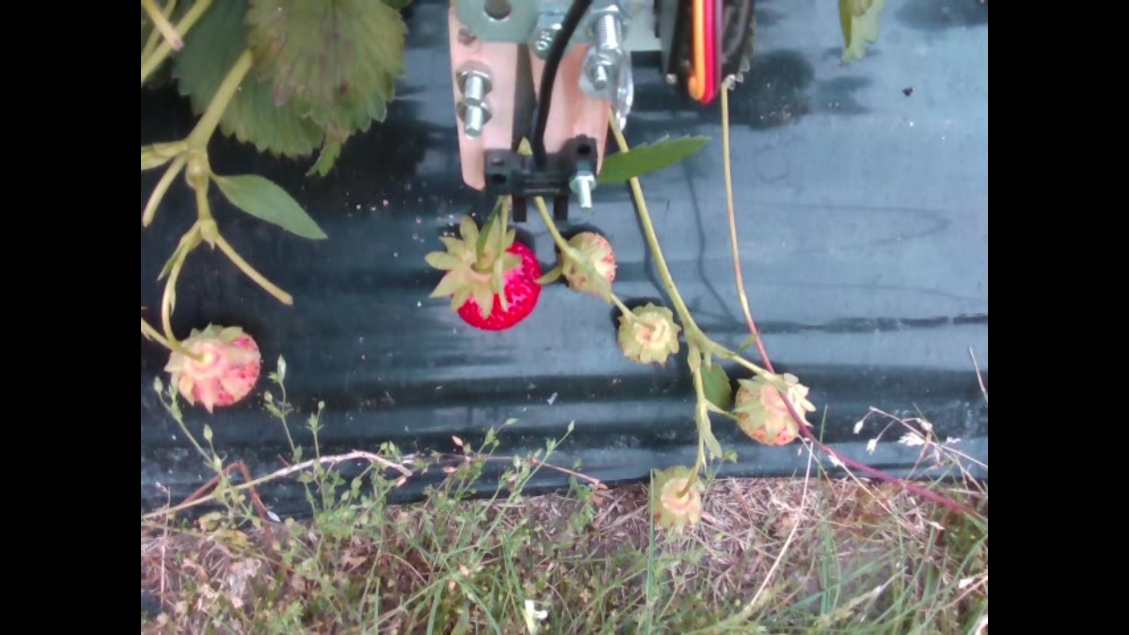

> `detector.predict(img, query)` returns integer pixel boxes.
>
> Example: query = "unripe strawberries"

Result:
[560,229,617,295]
[164,321,258,411]
[615,308,681,374]
[738,373,811,451]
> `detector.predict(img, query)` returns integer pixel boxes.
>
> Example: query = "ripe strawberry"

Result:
[443,233,547,329]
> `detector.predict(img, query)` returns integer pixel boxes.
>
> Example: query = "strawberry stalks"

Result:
[470,189,518,276]
[157,284,203,367]
[600,284,641,324]
[743,359,793,389]
[677,450,706,508]
[549,210,577,265]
